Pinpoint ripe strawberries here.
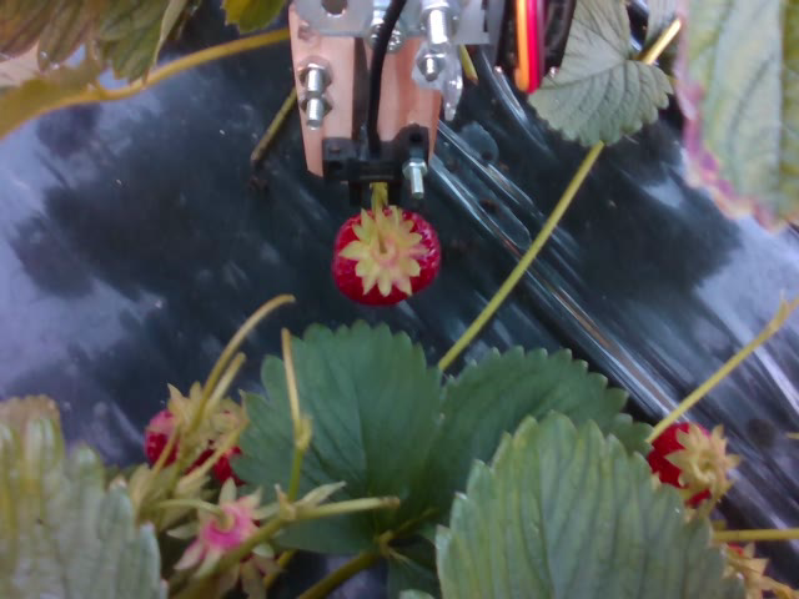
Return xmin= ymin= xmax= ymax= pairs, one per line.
xmin=205 ymin=415 xmax=271 ymax=476
xmin=653 ymin=428 xmax=719 ymax=502
xmin=337 ymin=211 xmax=438 ymax=298
xmin=148 ymin=410 xmax=212 ymax=464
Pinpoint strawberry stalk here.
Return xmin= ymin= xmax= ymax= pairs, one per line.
xmin=375 ymin=181 xmax=395 ymax=262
